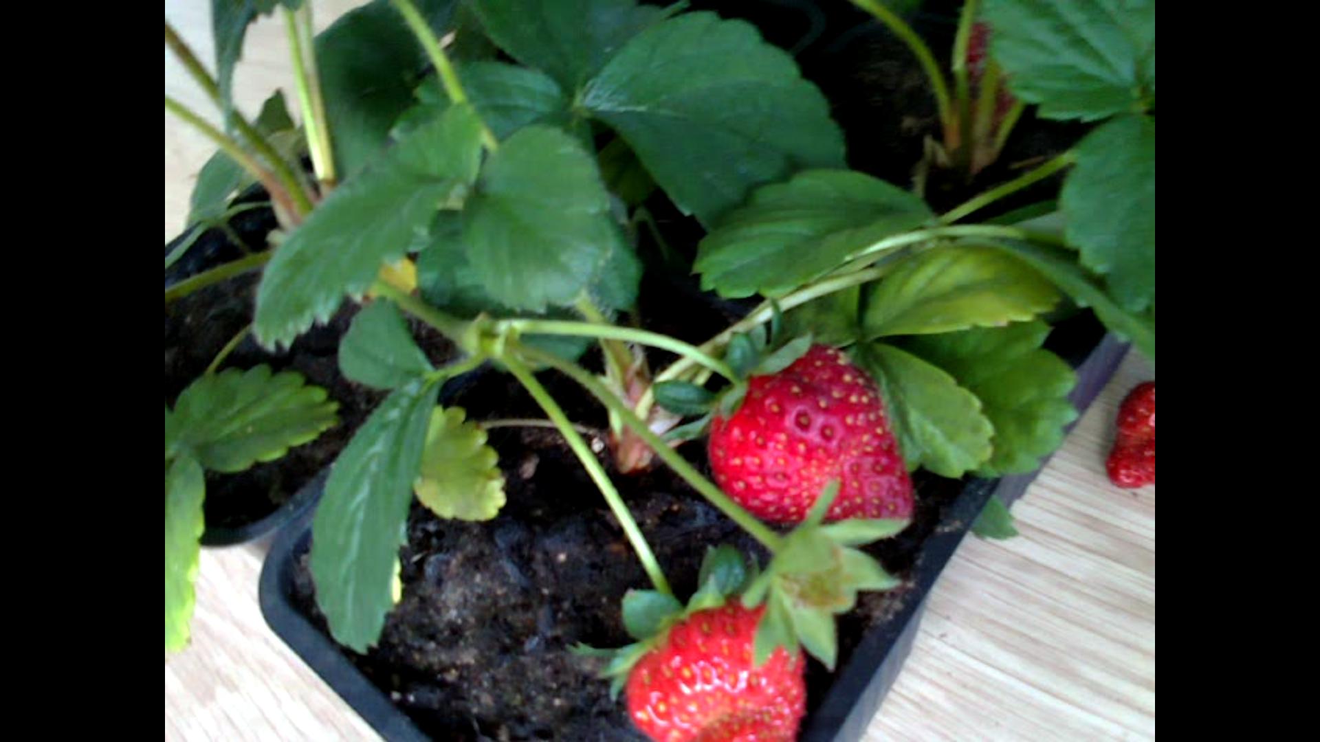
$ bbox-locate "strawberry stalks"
[695,461,785,568]
[604,435,682,648]
[566,322,761,386]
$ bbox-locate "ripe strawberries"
[605,592,802,742]
[708,340,916,534]
[1099,372,1158,492]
